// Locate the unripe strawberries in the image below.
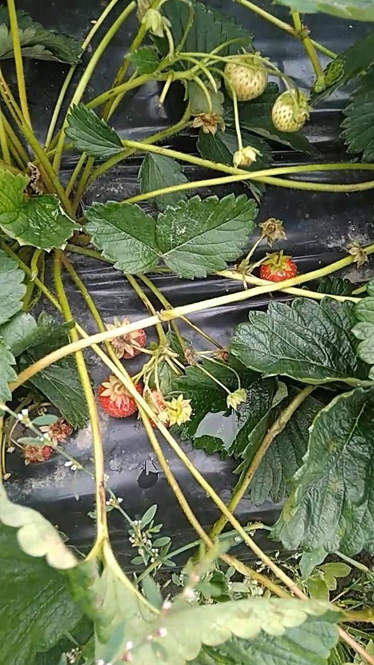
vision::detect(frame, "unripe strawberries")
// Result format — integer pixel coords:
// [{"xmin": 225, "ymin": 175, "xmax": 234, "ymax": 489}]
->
[
  {"xmin": 268, "ymin": 85, "xmax": 317, "ymax": 139},
  {"xmin": 222, "ymin": 52, "xmax": 269, "ymax": 103}
]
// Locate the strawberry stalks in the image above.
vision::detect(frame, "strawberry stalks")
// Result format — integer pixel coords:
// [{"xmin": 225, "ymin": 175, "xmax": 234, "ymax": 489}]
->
[
  {"xmin": 249, "ymin": 249, "xmax": 288, "ymax": 272},
  {"xmin": 119, "ymin": 335, "xmax": 153, "ymax": 357},
  {"xmin": 226, "ymin": 106, "xmax": 256, "ymax": 152},
  {"xmin": 228, "ymin": 45, "xmax": 266, "ymax": 72},
  {"xmin": 112, "ymin": 368, "xmax": 151, "ymax": 393},
  {"xmin": 284, "ymin": 69, "xmax": 308, "ymax": 112}
]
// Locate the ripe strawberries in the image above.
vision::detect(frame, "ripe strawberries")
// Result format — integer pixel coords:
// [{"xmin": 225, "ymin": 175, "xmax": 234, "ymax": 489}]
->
[
  {"xmin": 95, "ymin": 375, "xmax": 141, "ymax": 421},
  {"xmin": 105, "ymin": 318, "xmax": 149, "ymax": 360},
  {"xmin": 258, "ymin": 253, "xmax": 300, "ymax": 287}
]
